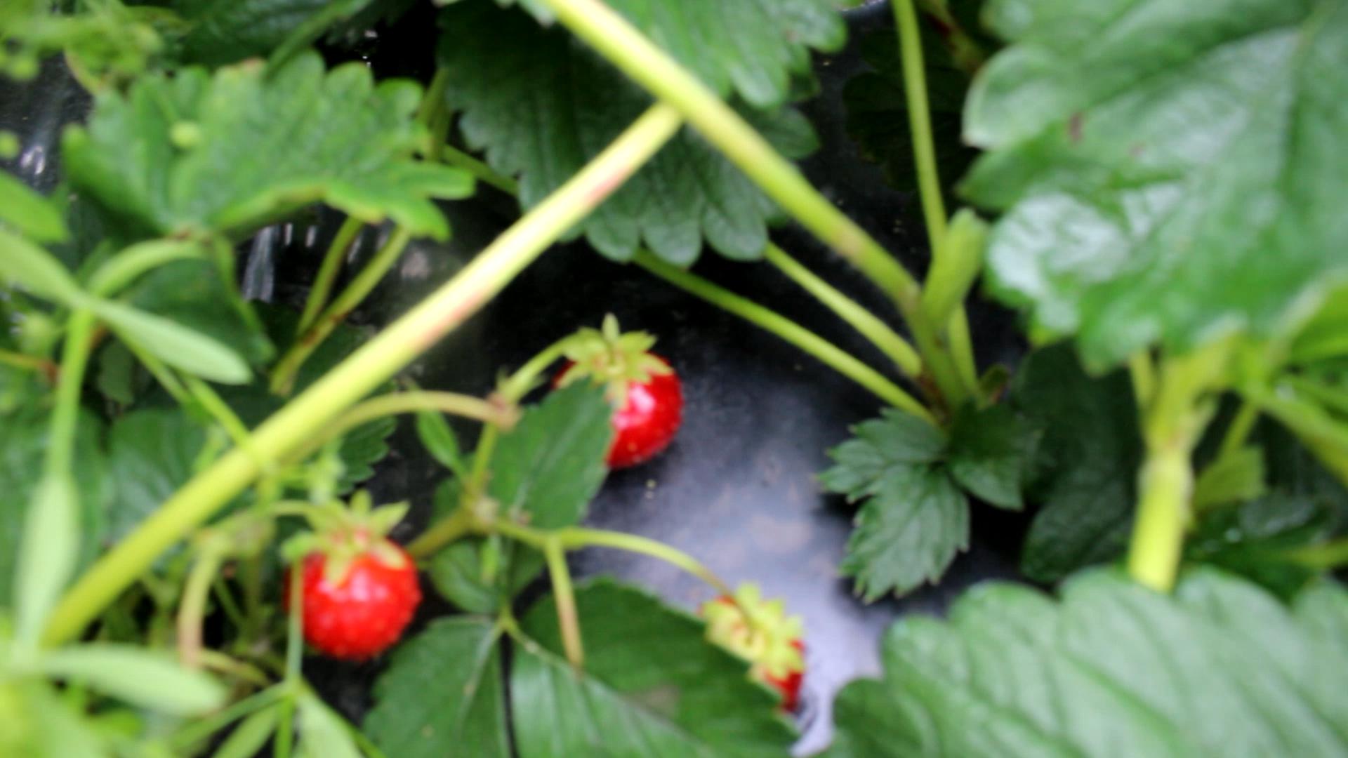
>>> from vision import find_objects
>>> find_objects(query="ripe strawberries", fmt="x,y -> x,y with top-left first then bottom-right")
679,591 -> 828,722
539,342 -> 693,464
263,512 -> 428,671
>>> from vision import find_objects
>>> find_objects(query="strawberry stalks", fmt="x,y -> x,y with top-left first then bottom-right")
715,555 -> 771,638
257,488 -> 372,559
502,318 -> 639,375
